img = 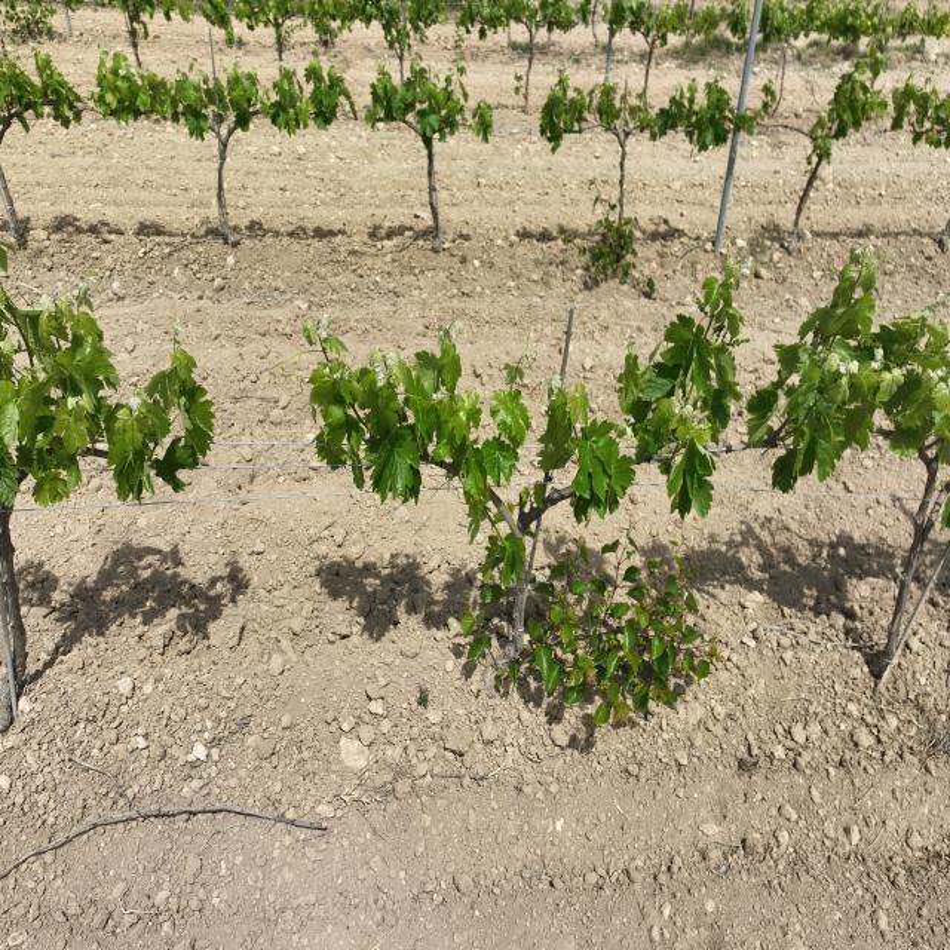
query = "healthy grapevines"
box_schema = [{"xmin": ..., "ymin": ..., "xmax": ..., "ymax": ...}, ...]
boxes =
[
  {"xmin": 745, "ymin": 240, "xmax": 950, "ymax": 699},
  {"xmin": 300, "ymin": 315, "xmax": 745, "ymax": 698},
  {"xmin": 0, "ymin": 246, "xmax": 230, "ymax": 747}
]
